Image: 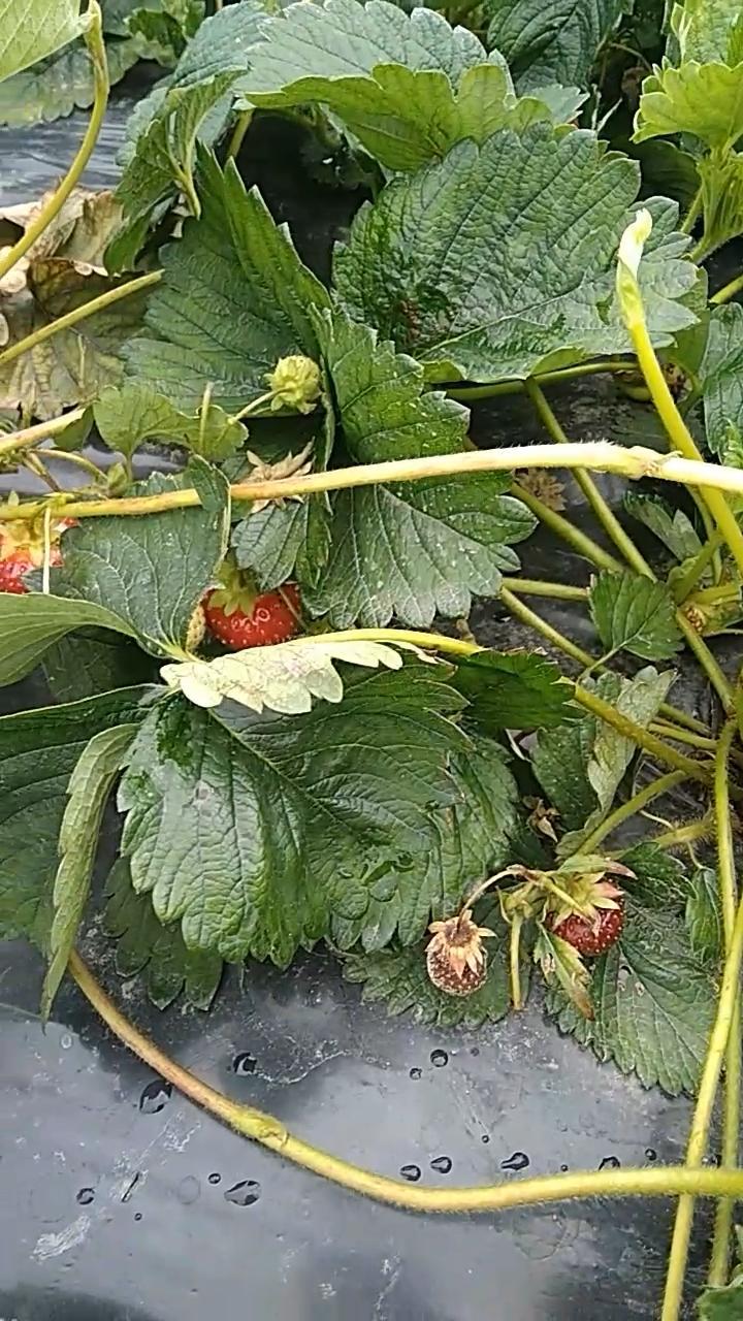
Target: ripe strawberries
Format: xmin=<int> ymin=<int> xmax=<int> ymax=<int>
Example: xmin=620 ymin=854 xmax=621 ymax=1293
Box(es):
xmin=3 ymin=492 xmax=95 ymax=613
xmin=205 ymin=573 xmax=297 ymax=654
xmin=566 ymin=894 xmax=623 ymax=954
xmin=424 ymin=931 xmax=495 ymax=998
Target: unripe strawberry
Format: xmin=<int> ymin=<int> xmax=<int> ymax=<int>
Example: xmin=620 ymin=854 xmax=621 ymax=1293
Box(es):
xmin=265 ymin=349 xmax=327 ymax=414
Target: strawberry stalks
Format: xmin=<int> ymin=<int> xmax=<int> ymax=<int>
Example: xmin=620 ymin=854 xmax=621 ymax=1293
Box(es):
xmin=547 ymin=859 xmax=596 ymax=922
xmin=246 ymin=366 xmax=296 ymax=409
xmin=448 ymin=873 xmax=476 ymax=949
xmin=16 ymin=477 xmax=95 ymax=549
